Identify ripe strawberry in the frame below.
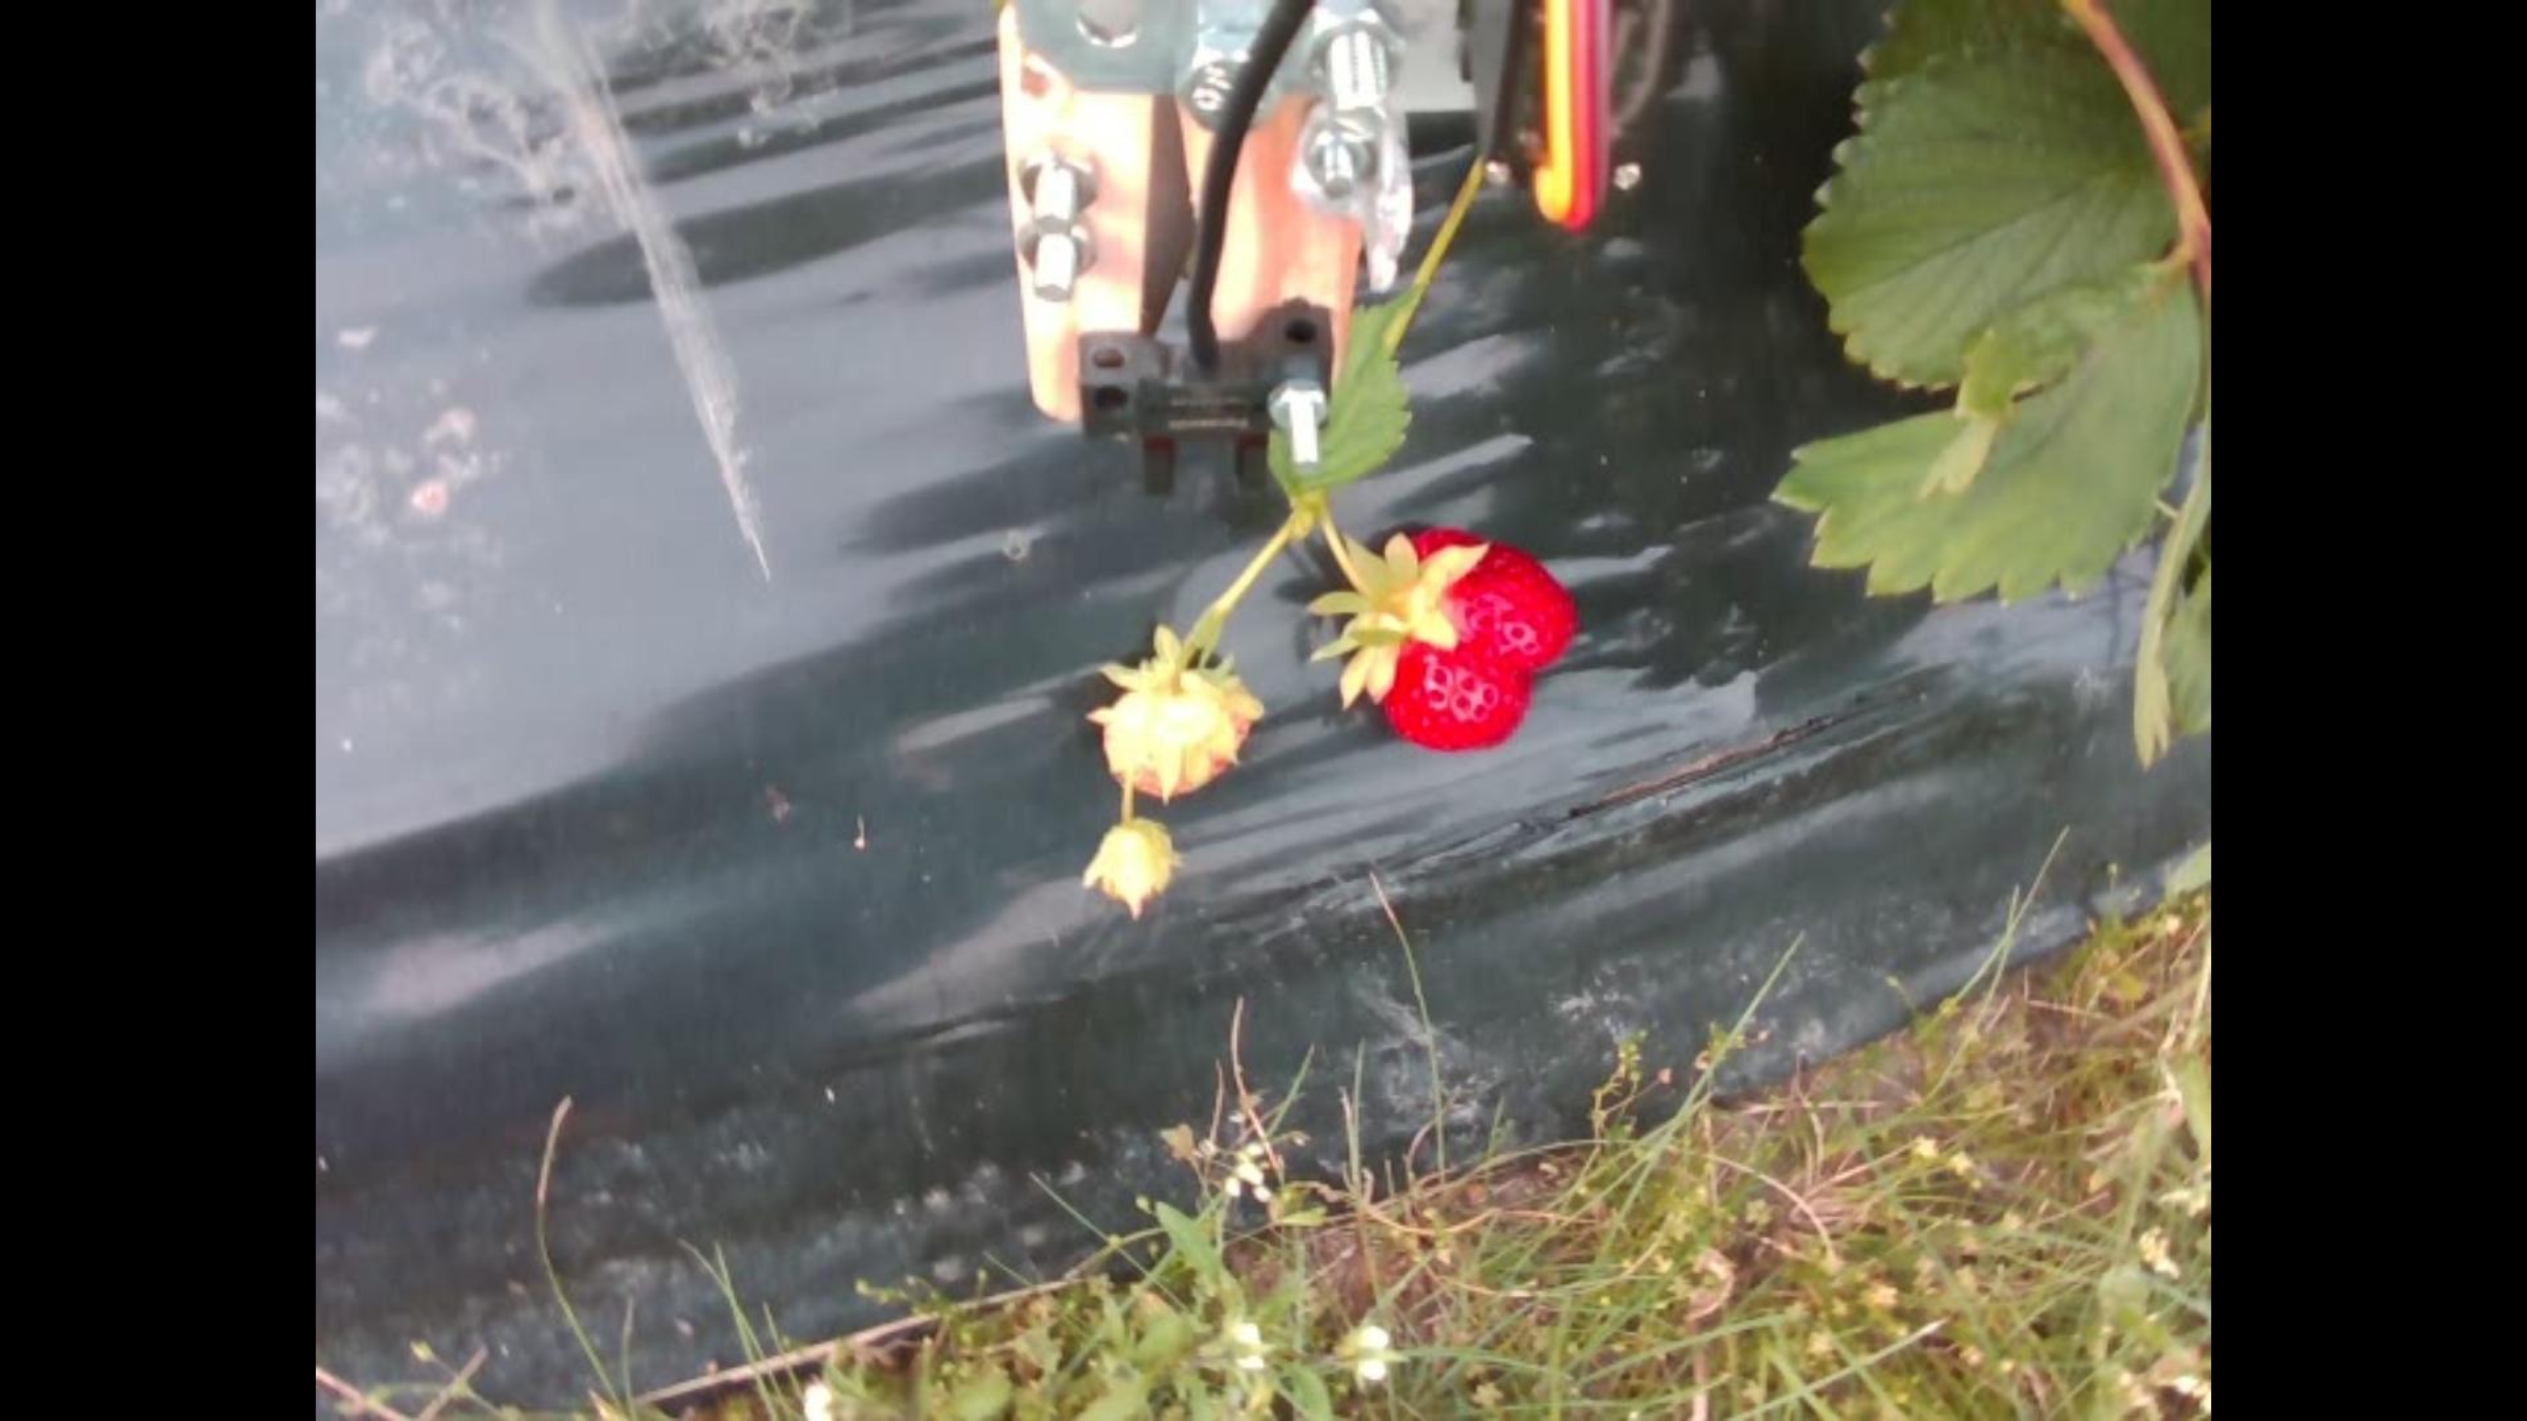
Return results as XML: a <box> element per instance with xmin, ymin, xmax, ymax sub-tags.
<box><xmin>1334</xmin><ymin>513</ymin><xmax>1579</xmax><ymax>763</ymax></box>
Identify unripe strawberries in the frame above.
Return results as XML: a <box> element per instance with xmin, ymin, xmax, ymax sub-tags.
<box><xmin>1089</xmin><ymin>650</ymin><xmax>1273</xmax><ymax>797</ymax></box>
<box><xmin>1087</xmin><ymin>812</ymin><xmax>1185</xmax><ymax>916</ymax></box>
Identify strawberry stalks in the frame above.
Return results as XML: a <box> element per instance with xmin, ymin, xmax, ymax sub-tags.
<box><xmin>1160</xmin><ymin>578</ymin><xmax>1233</xmax><ymax>712</ymax></box>
<box><xmin>1305</xmin><ymin>515</ymin><xmax>1421</xmax><ymax>636</ymax></box>
<box><xmin>1104</xmin><ymin>768</ymin><xmax>1152</xmax><ymax>861</ymax></box>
